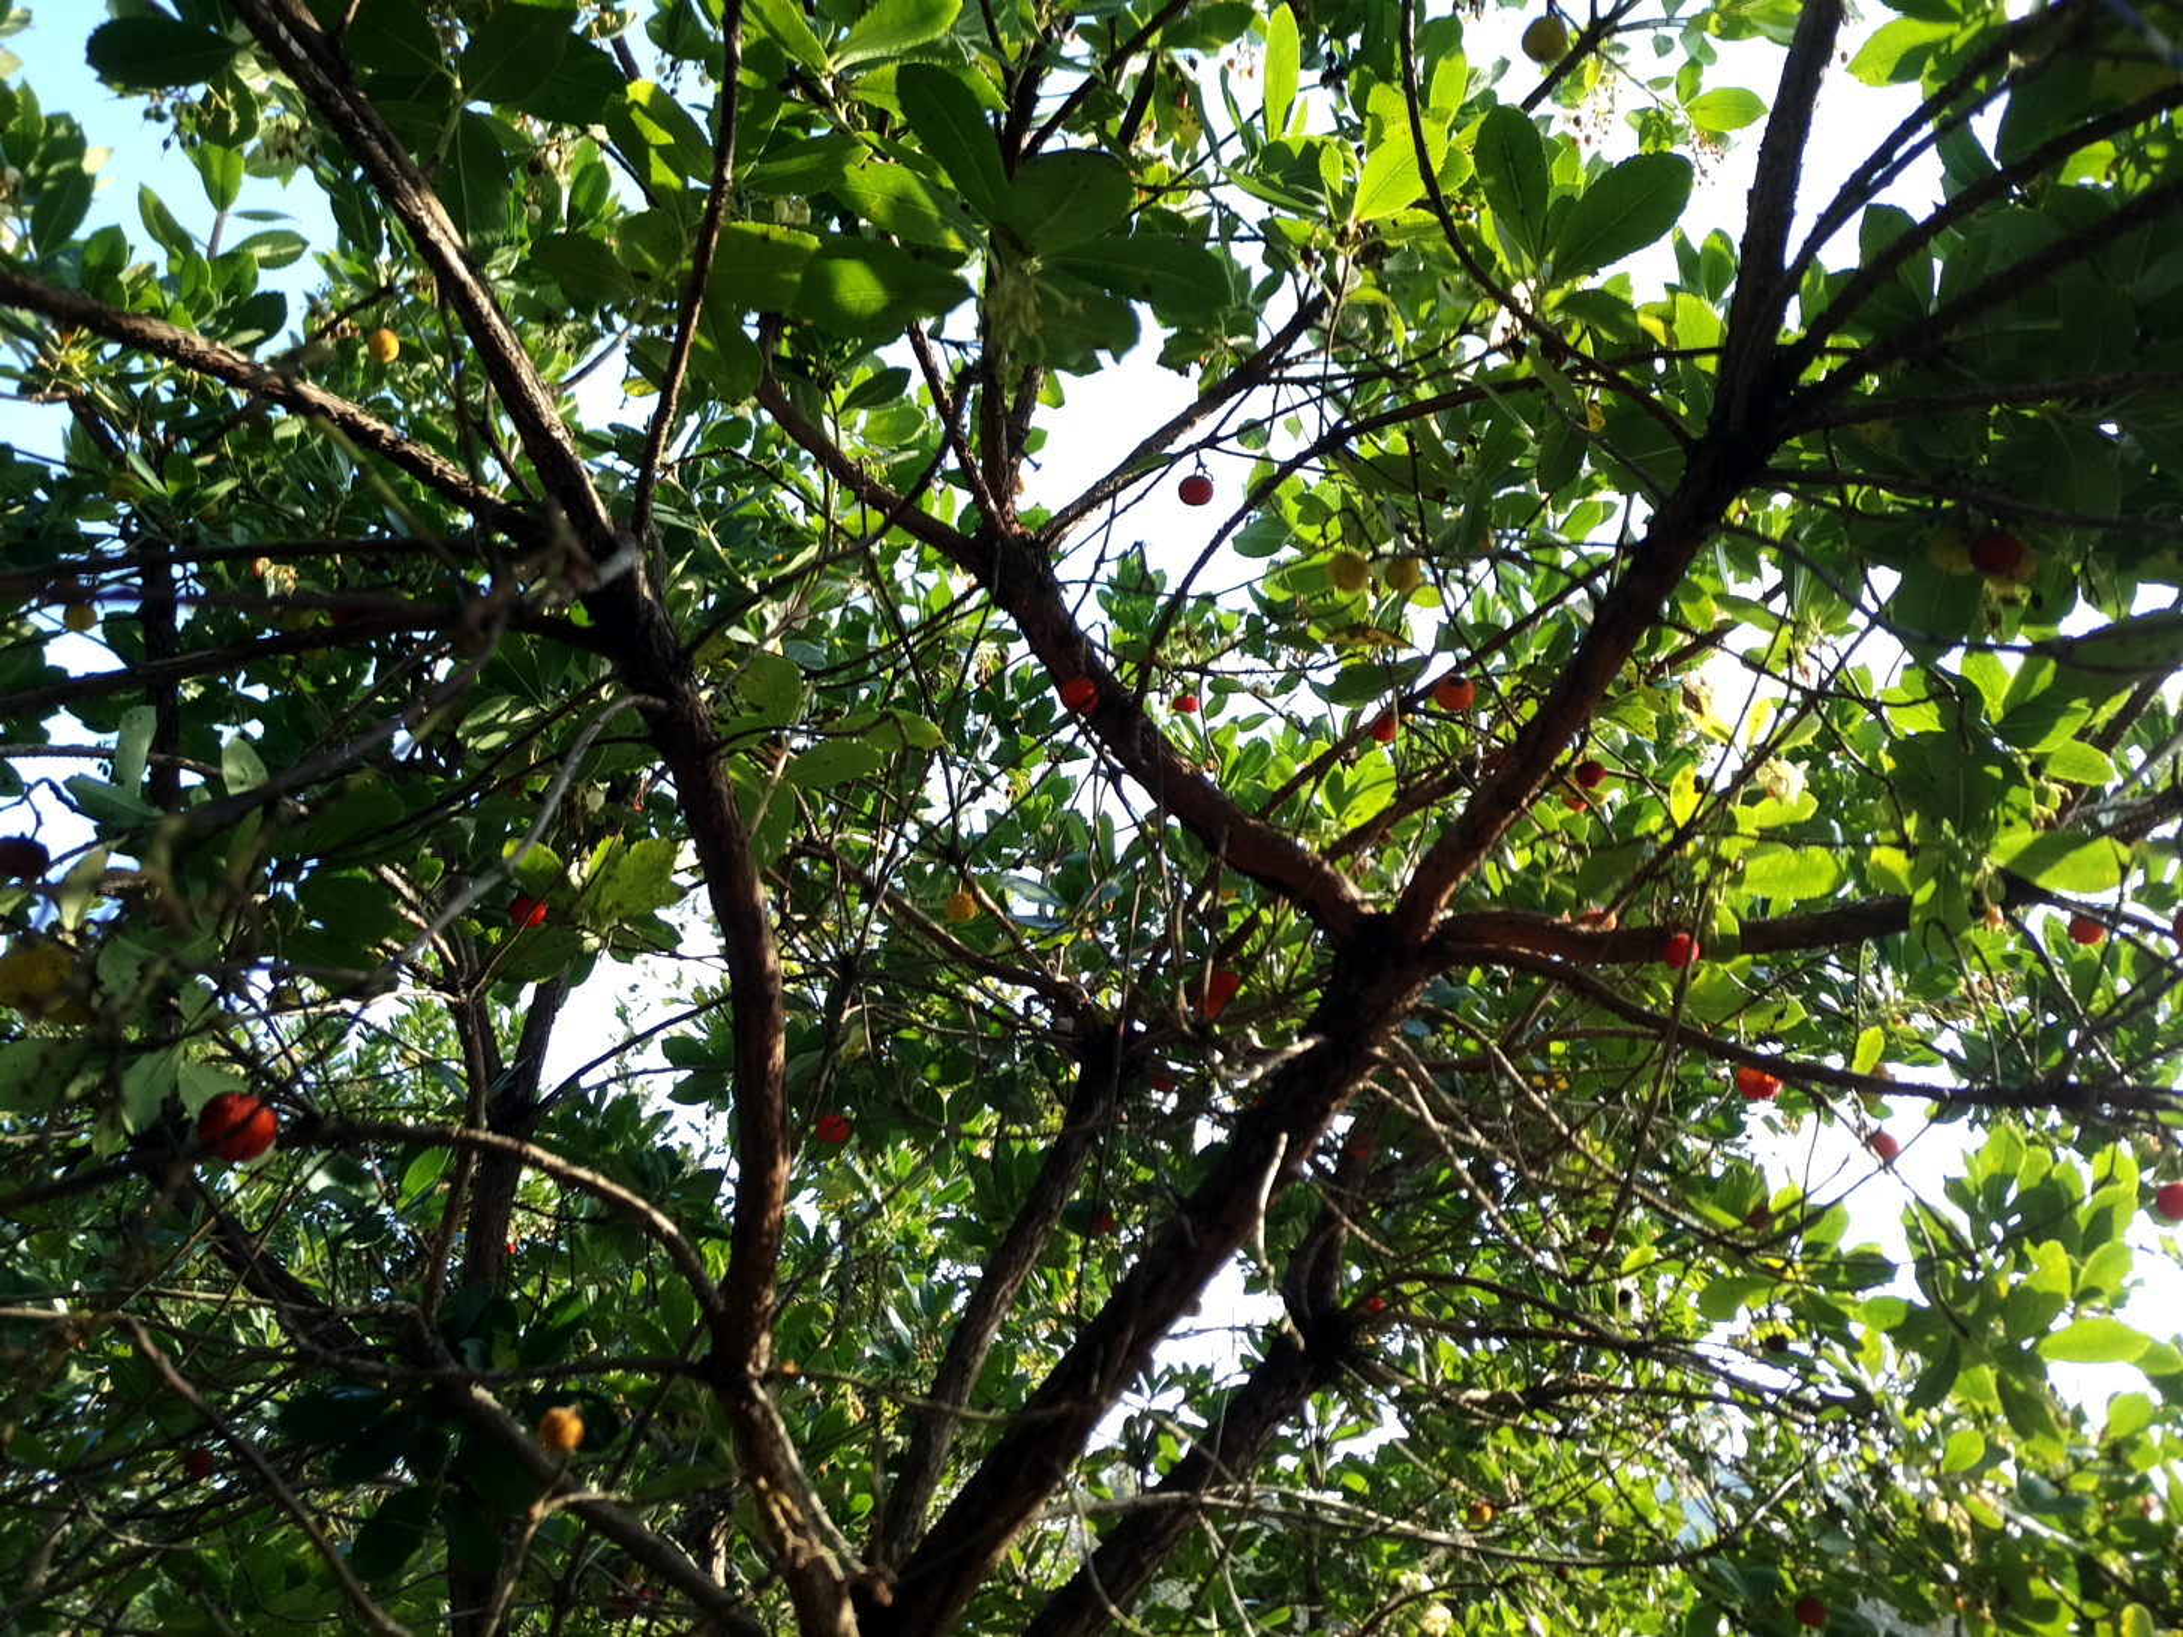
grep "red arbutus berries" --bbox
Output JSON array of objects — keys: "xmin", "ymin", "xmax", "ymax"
[
  {"xmin": 1737, "ymin": 1061, "xmax": 1784, "ymax": 1103},
  {"xmin": 2066, "ymin": 913, "xmax": 2110, "ymax": 948},
  {"xmin": 2154, "ymin": 1178, "xmax": 2183, "ymax": 1220},
  {"xmin": 1183, "ymin": 696, "xmax": 1200, "ymax": 713},
  {"xmin": 195, "ymin": 1083, "xmax": 281, "ymax": 1163},
  {"xmin": 816, "ymin": 1113, "xmax": 852, "ymax": 1145},
  {"xmin": 1179, "ymin": 475, "xmax": 1213, "ymax": 507},
  {"xmin": 1092, "ymin": 1215, "xmax": 1115, "ymax": 1234},
  {"xmin": 1796, "ymin": 1598, "xmax": 1829, "ymax": 1630},
  {"xmin": 509, "ymin": 895, "xmax": 551, "ymax": 927},
  {"xmin": 1437, "ymin": 672, "xmax": 1476, "ymax": 710},
  {"xmin": 1169, "ymin": 695, "xmax": 1185, "ymax": 711},
  {"xmin": 1060, "ymin": 678, "xmax": 1099, "ymax": 713},
  {"xmin": 1969, "ymin": 530, "xmax": 2021, "ymax": 576},
  {"xmin": 1193, "ymin": 969, "xmax": 1246, "ymax": 1016},
  {"xmin": 1576, "ymin": 761, "xmax": 1607, "ymax": 788},
  {"xmin": 1867, "ymin": 1128, "xmax": 1904, "ymax": 1165},
  {"xmin": 1365, "ymin": 1294, "xmax": 1386, "ymax": 1314},
  {"xmin": 1662, "ymin": 929, "xmax": 1702, "ymax": 970},
  {"xmin": 1371, "ymin": 715, "xmax": 1400, "ymax": 743}
]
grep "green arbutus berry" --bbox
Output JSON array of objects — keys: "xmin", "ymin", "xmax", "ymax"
[{"xmin": 1927, "ymin": 524, "xmax": 1975, "ymax": 577}]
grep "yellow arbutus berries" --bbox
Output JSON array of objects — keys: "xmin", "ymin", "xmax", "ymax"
[
  {"xmin": 944, "ymin": 889, "xmax": 979, "ymax": 921},
  {"xmin": 63, "ymin": 601, "xmax": 98, "ymax": 632},
  {"xmin": 539, "ymin": 1399, "xmax": 583, "ymax": 1450},
  {"xmin": 369, "ymin": 327, "xmax": 401, "ymax": 362},
  {"xmin": 1469, "ymin": 1501, "xmax": 1493, "ymax": 1525},
  {"xmin": 1324, "ymin": 549, "xmax": 1367, "ymax": 590},
  {"xmin": 0, "ymin": 936, "xmax": 75, "ymax": 1014},
  {"xmin": 1386, "ymin": 556, "xmax": 1423, "ymax": 593}
]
